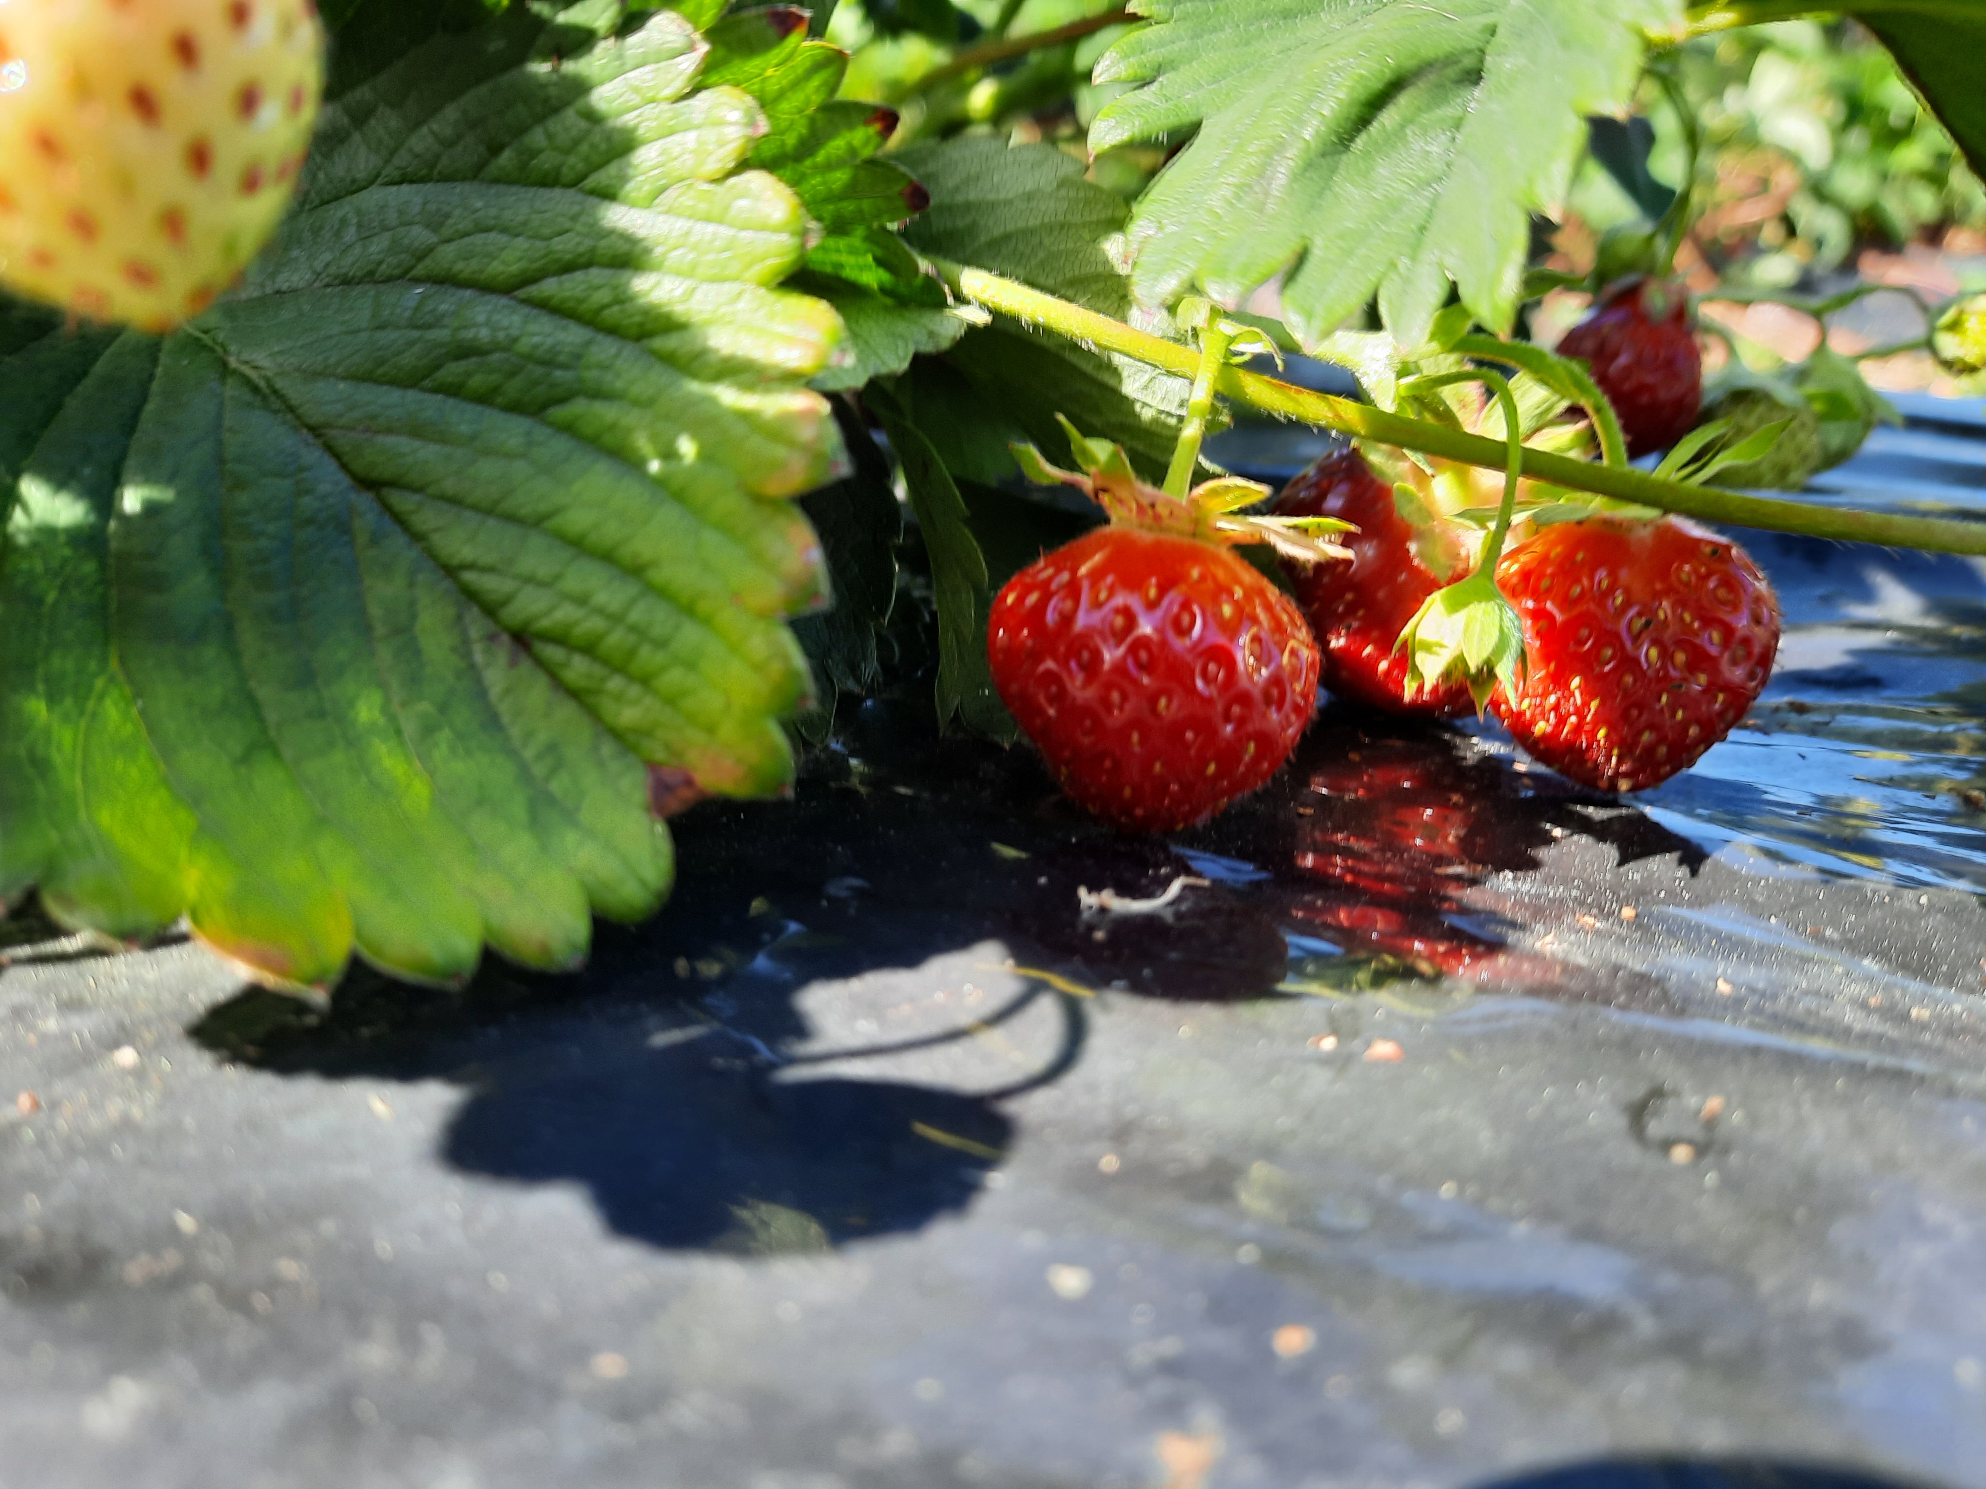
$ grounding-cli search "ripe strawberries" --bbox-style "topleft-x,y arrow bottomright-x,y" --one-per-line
1582,298 -> 1719,439
958,510 -> 1313,823
1498,503 -> 1763,774
1288,432 -> 1518,701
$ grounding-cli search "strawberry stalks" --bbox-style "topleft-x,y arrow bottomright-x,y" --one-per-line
1154,295 -> 1260,551
1441,360 -> 1520,602
1489,326 -> 1641,538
